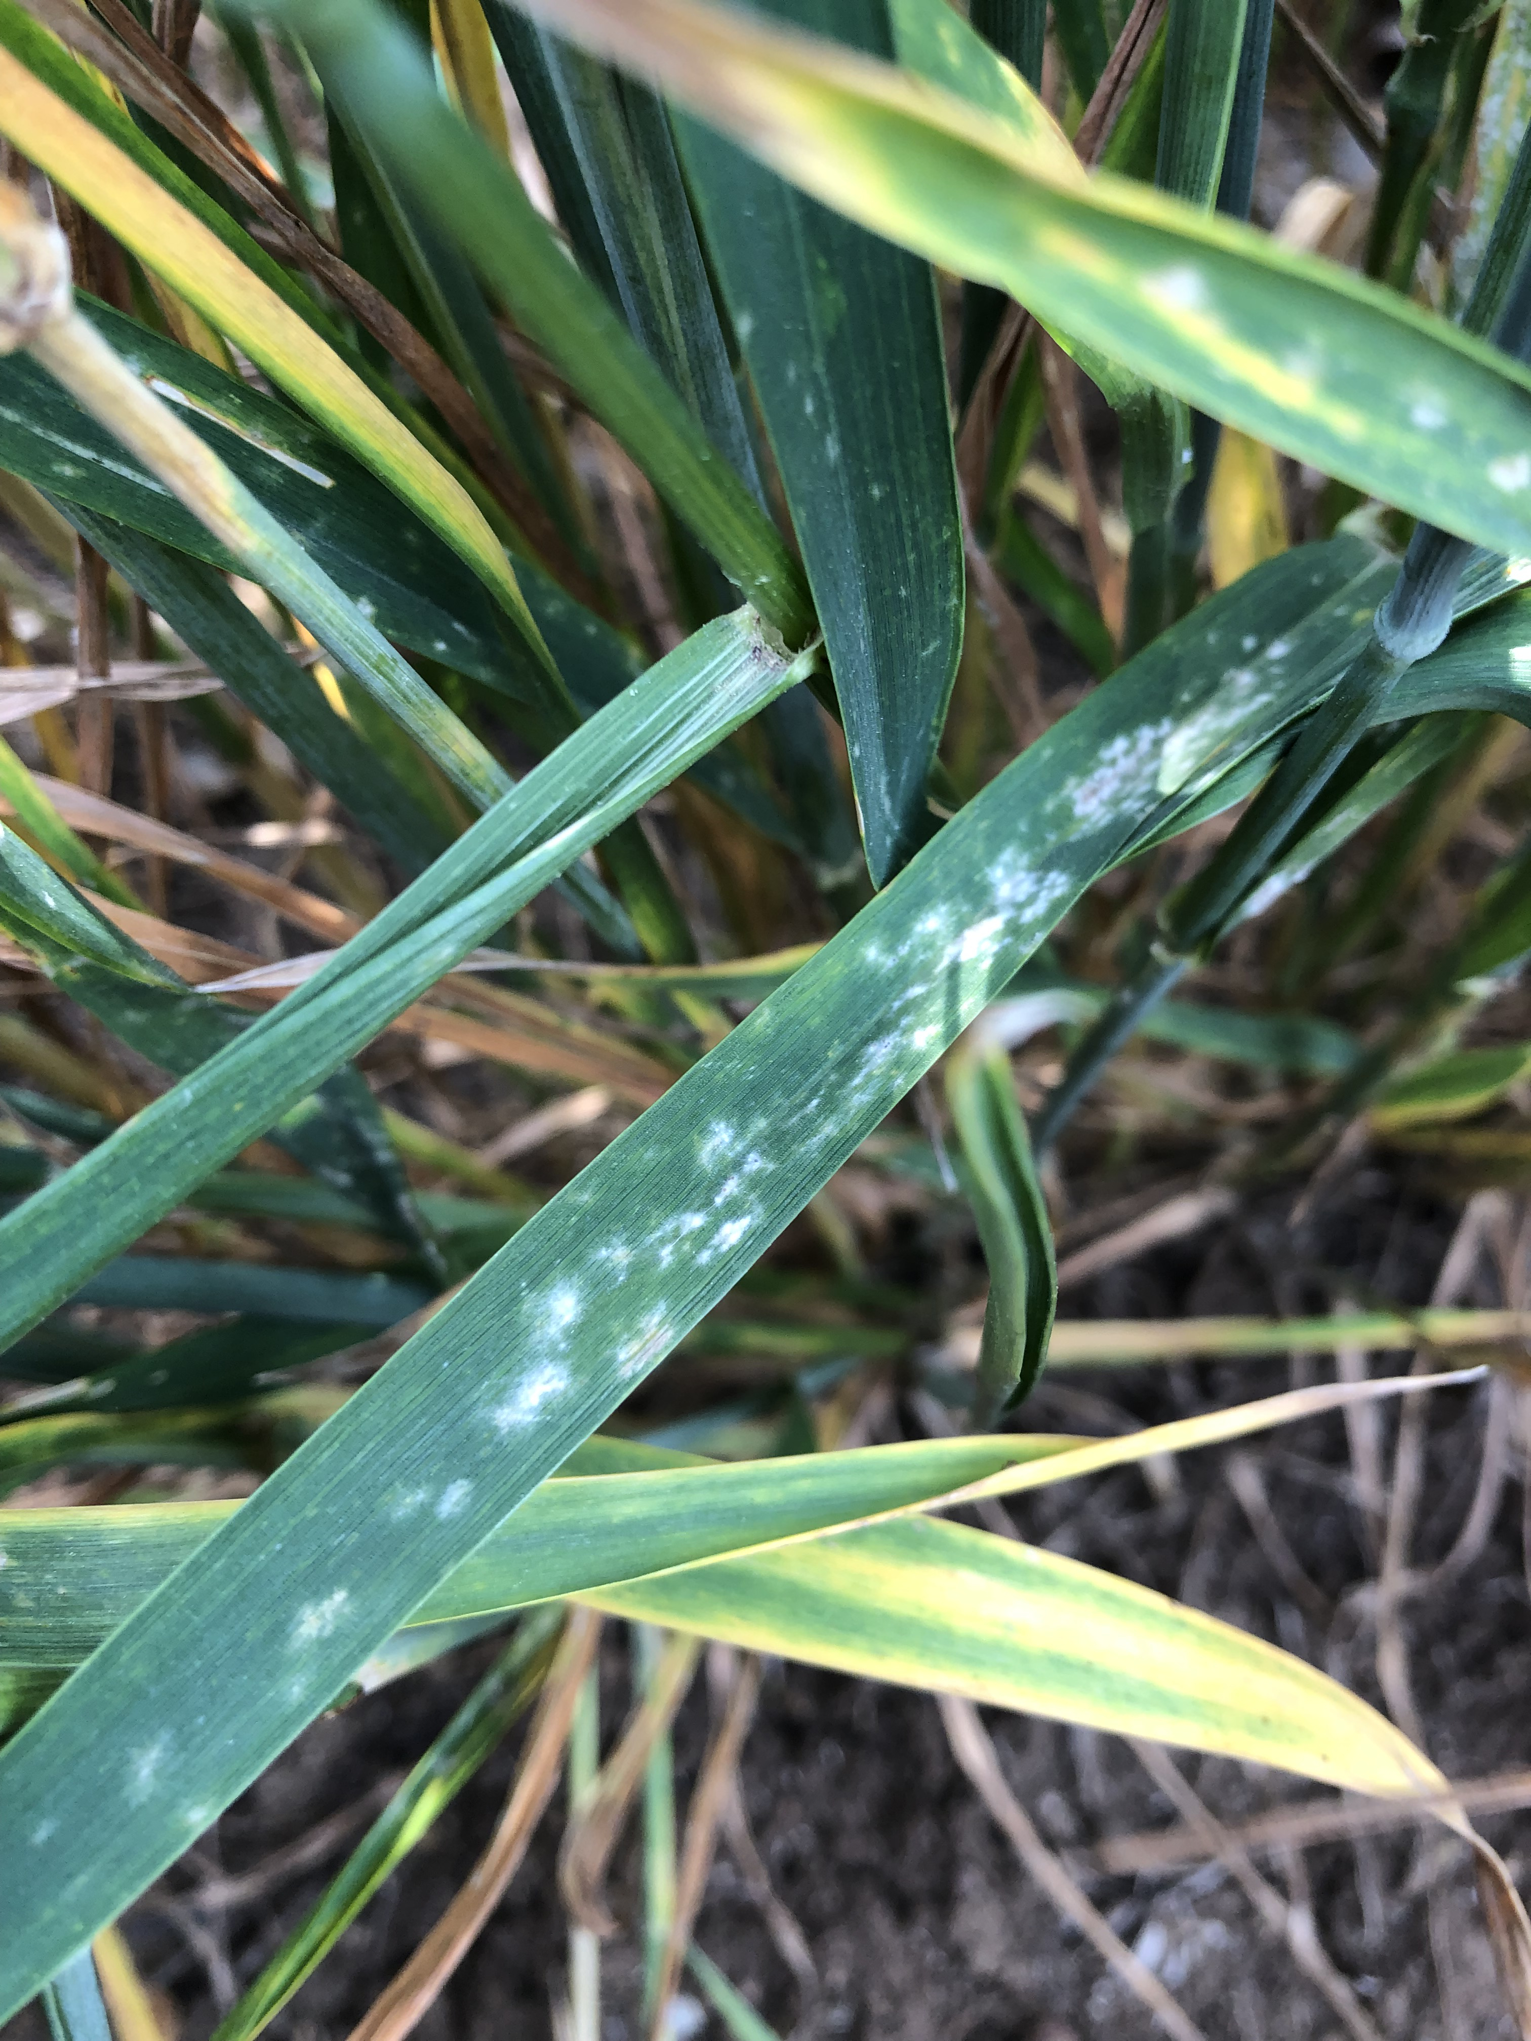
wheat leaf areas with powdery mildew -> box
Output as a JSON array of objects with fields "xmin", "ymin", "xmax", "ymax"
[
  {"xmin": 1432, "ymin": 17, "xmax": 1531, "ymax": 313},
  {"xmin": 121, "ymin": 603, "xmax": 1452, "ymax": 1852},
  {"xmin": 1136, "ymin": 218, "xmax": 1531, "ymax": 544},
  {"xmin": 712, "ymin": 296, "xmax": 976, "ymax": 625}
]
